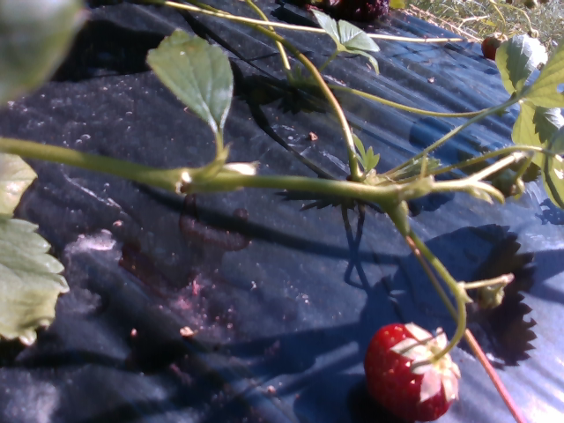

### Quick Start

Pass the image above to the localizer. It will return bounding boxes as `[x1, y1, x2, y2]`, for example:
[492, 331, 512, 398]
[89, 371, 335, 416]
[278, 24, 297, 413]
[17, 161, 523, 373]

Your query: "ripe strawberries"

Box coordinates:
[483, 32, 506, 58]
[363, 325, 463, 423]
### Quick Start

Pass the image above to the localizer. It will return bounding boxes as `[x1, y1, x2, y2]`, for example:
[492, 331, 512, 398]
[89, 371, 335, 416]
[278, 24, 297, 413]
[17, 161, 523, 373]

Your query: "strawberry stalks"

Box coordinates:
[422, 264, 468, 374]
[496, 8, 507, 43]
